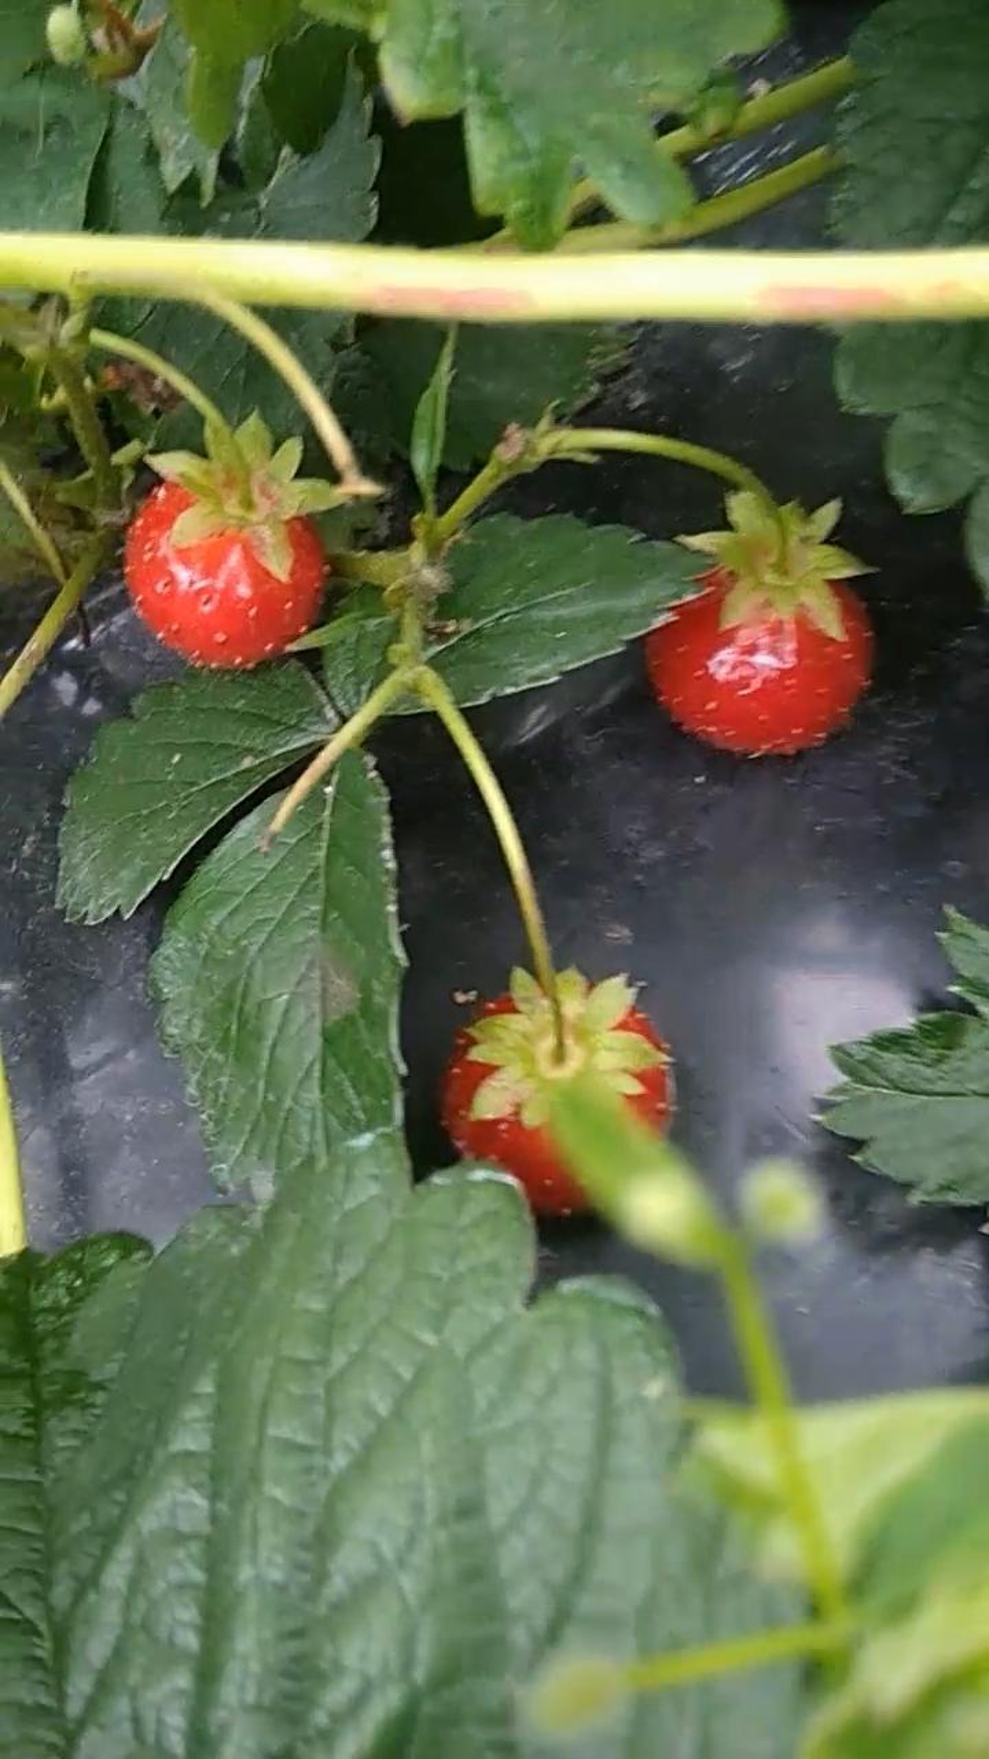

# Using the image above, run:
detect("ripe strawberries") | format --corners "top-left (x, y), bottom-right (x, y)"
top-left (443, 985), bottom-right (704, 1213)
top-left (121, 479), bottom-right (323, 703)
top-left (655, 524), bottom-right (883, 762)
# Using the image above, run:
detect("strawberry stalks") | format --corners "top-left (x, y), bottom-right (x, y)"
top-left (427, 664), bottom-right (610, 1087)
top-left (90, 335), bottom-right (291, 571)
top-left (575, 412), bottom-right (841, 595)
